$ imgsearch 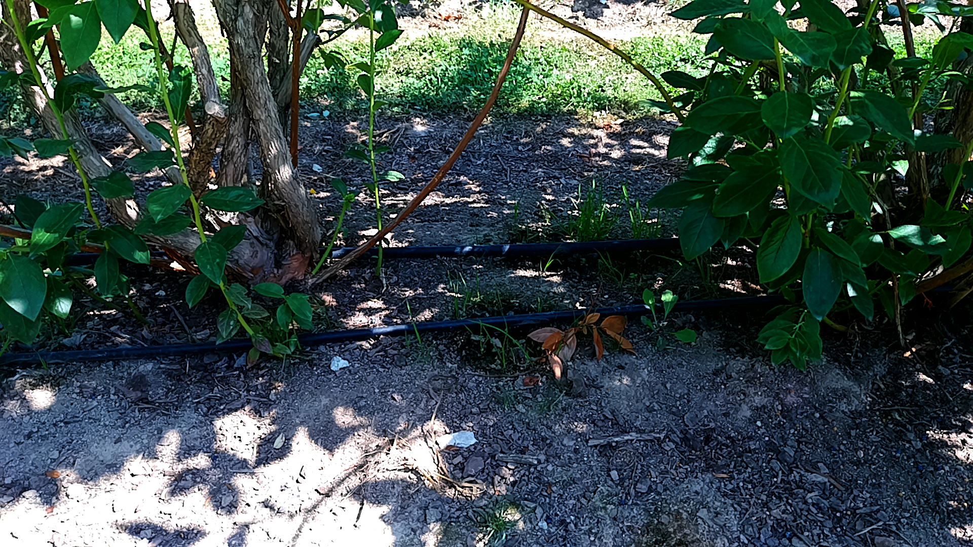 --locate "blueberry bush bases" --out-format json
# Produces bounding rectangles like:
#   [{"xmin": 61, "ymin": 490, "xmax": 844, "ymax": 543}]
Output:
[
  {"xmin": 54, "ymin": 104, "xmax": 403, "ymax": 374},
  {"xmin": 762, "ymin": 104, "xmax": 971, "ymax": 382}
]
